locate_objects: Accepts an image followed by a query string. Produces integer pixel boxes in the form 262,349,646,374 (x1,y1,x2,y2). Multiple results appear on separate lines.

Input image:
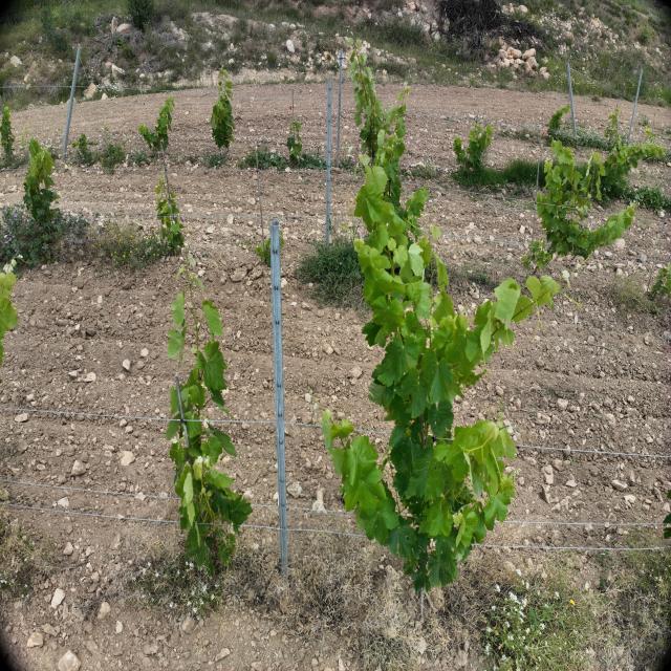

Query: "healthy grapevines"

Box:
315,145,566,602
158,255,258,607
